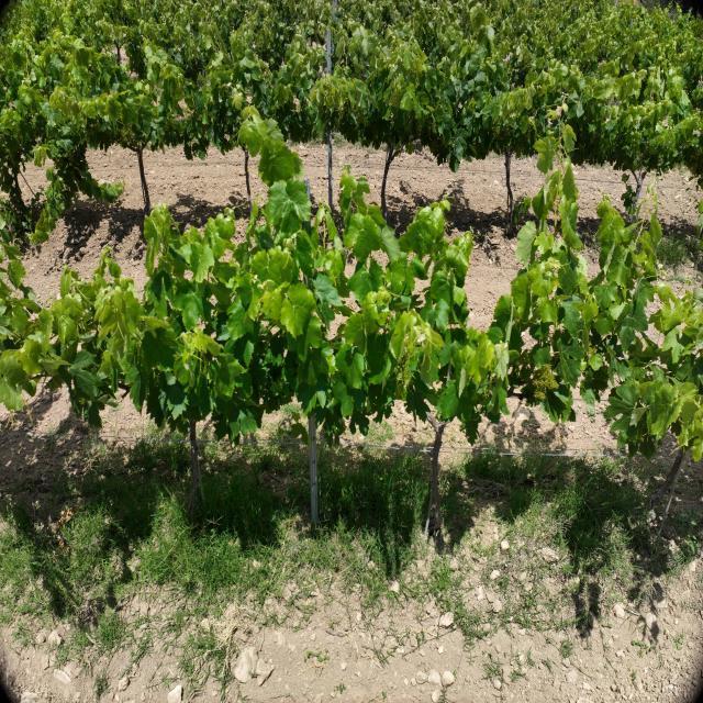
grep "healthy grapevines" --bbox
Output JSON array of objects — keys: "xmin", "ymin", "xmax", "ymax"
[
  {"xmin": 284, "ymin": 212, "xmax": 588, "ymax": 571},
  {"xmin": 593, "ymin": 213, "xmax": 703, "ymax": 529},
  {"xmin": 0, "ymin": 179, "xmax": 315, "ymax": 532}
]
